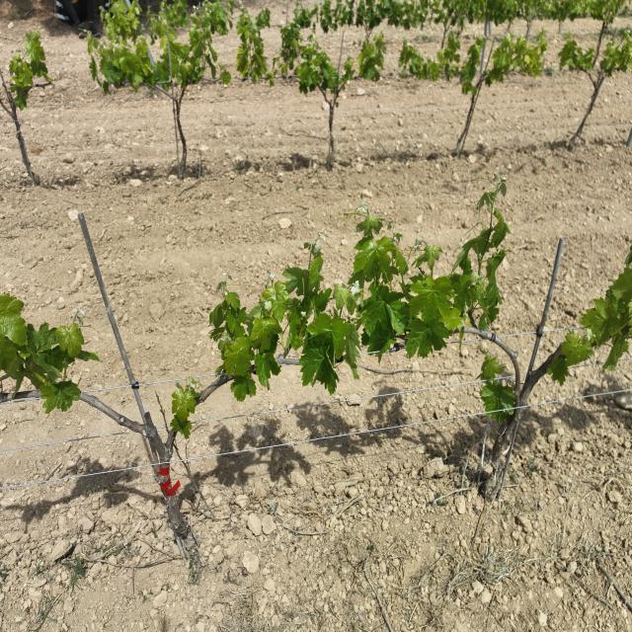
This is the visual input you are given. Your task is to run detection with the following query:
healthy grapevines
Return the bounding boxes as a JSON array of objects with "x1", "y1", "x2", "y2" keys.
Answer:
[
  {"x1": 354, "y1": 192, "x2": 630, "y2": 522},
  {"x1": 0, "y1": 230, "x2": 361, "y2": 596}
]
